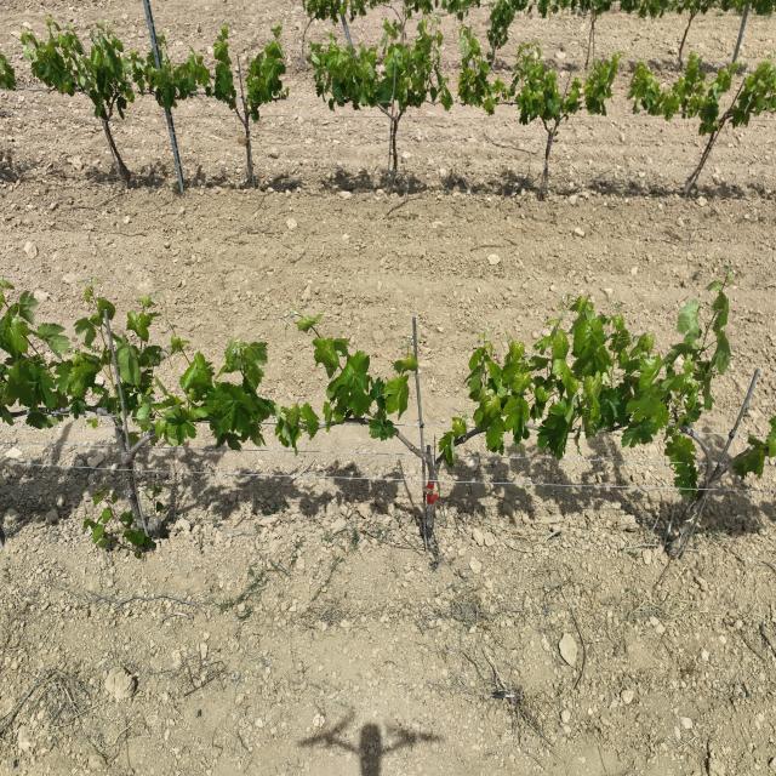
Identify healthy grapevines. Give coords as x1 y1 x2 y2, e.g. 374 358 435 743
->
275 307 583 561
0 290 270 564
565 278 776 578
